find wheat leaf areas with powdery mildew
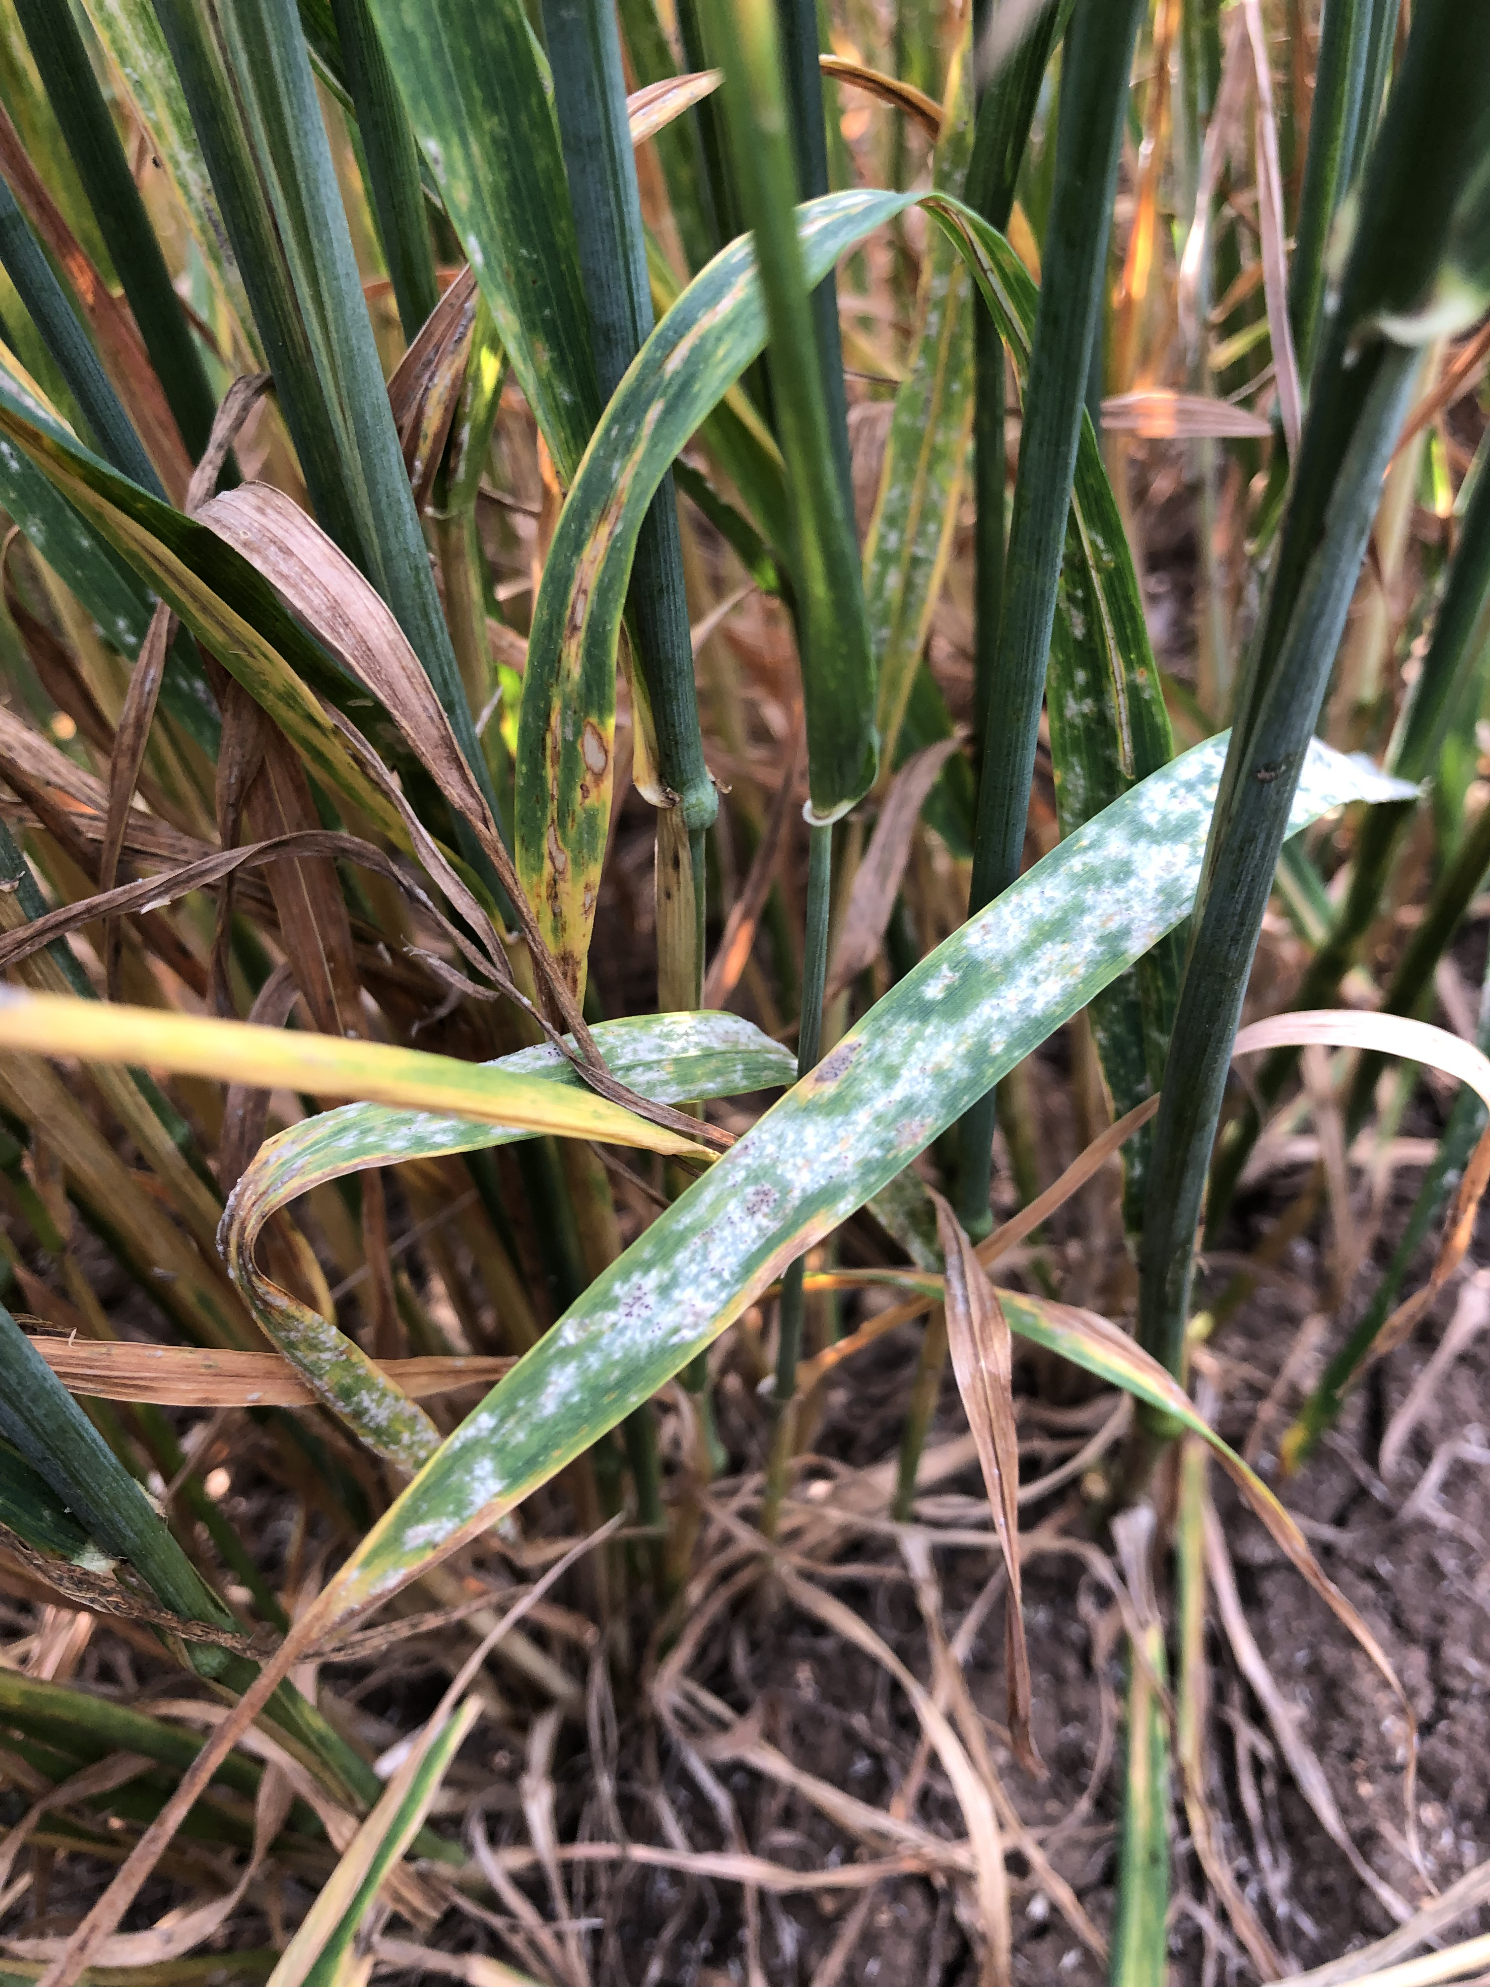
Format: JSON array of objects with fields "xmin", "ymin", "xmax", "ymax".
[
  {"xmin": 356, "ymin": 721, "xmax": 1235, "ymax": 1750},
  {"xmin": 881, "ymin": 228, "xmax": 985, "ymax": 729},
  {"xmin": 181, "ymin": 1091, "xmax": 490, "ymax": 1474},
  {"xmin": 102, "ymin": 9, "xmax": 271, "ymax": 371},
  {"xmin": 1303, "ymin": 726, "xmax": 1418, "ymax": 858},
  {"xmin": 400, "ymin": 143, "xmax": 517, "ymax": 272},
  {"xmin": 0, "ymin": 467, "xmax": 213, "ymax": 724},
  {"xmin": 0, "ymin": 360, "xmax": 123, "ymax": 455},
  {"xmin": 1046, "ymin": 431, "xmax": 1226, "ymax": 825}
]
